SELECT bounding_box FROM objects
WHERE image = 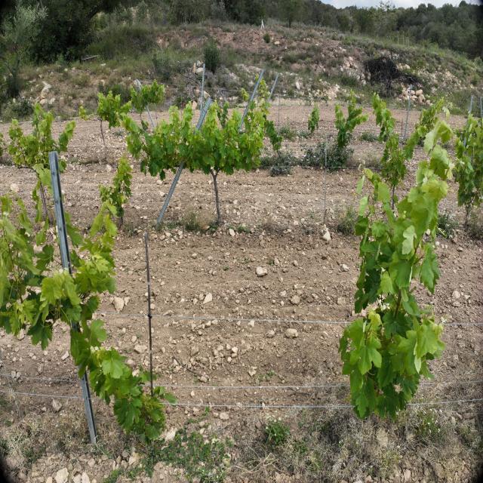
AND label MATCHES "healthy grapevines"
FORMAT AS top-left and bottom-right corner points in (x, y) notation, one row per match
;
(0, 192), (165, 461)
(331, 138), (455, 439)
